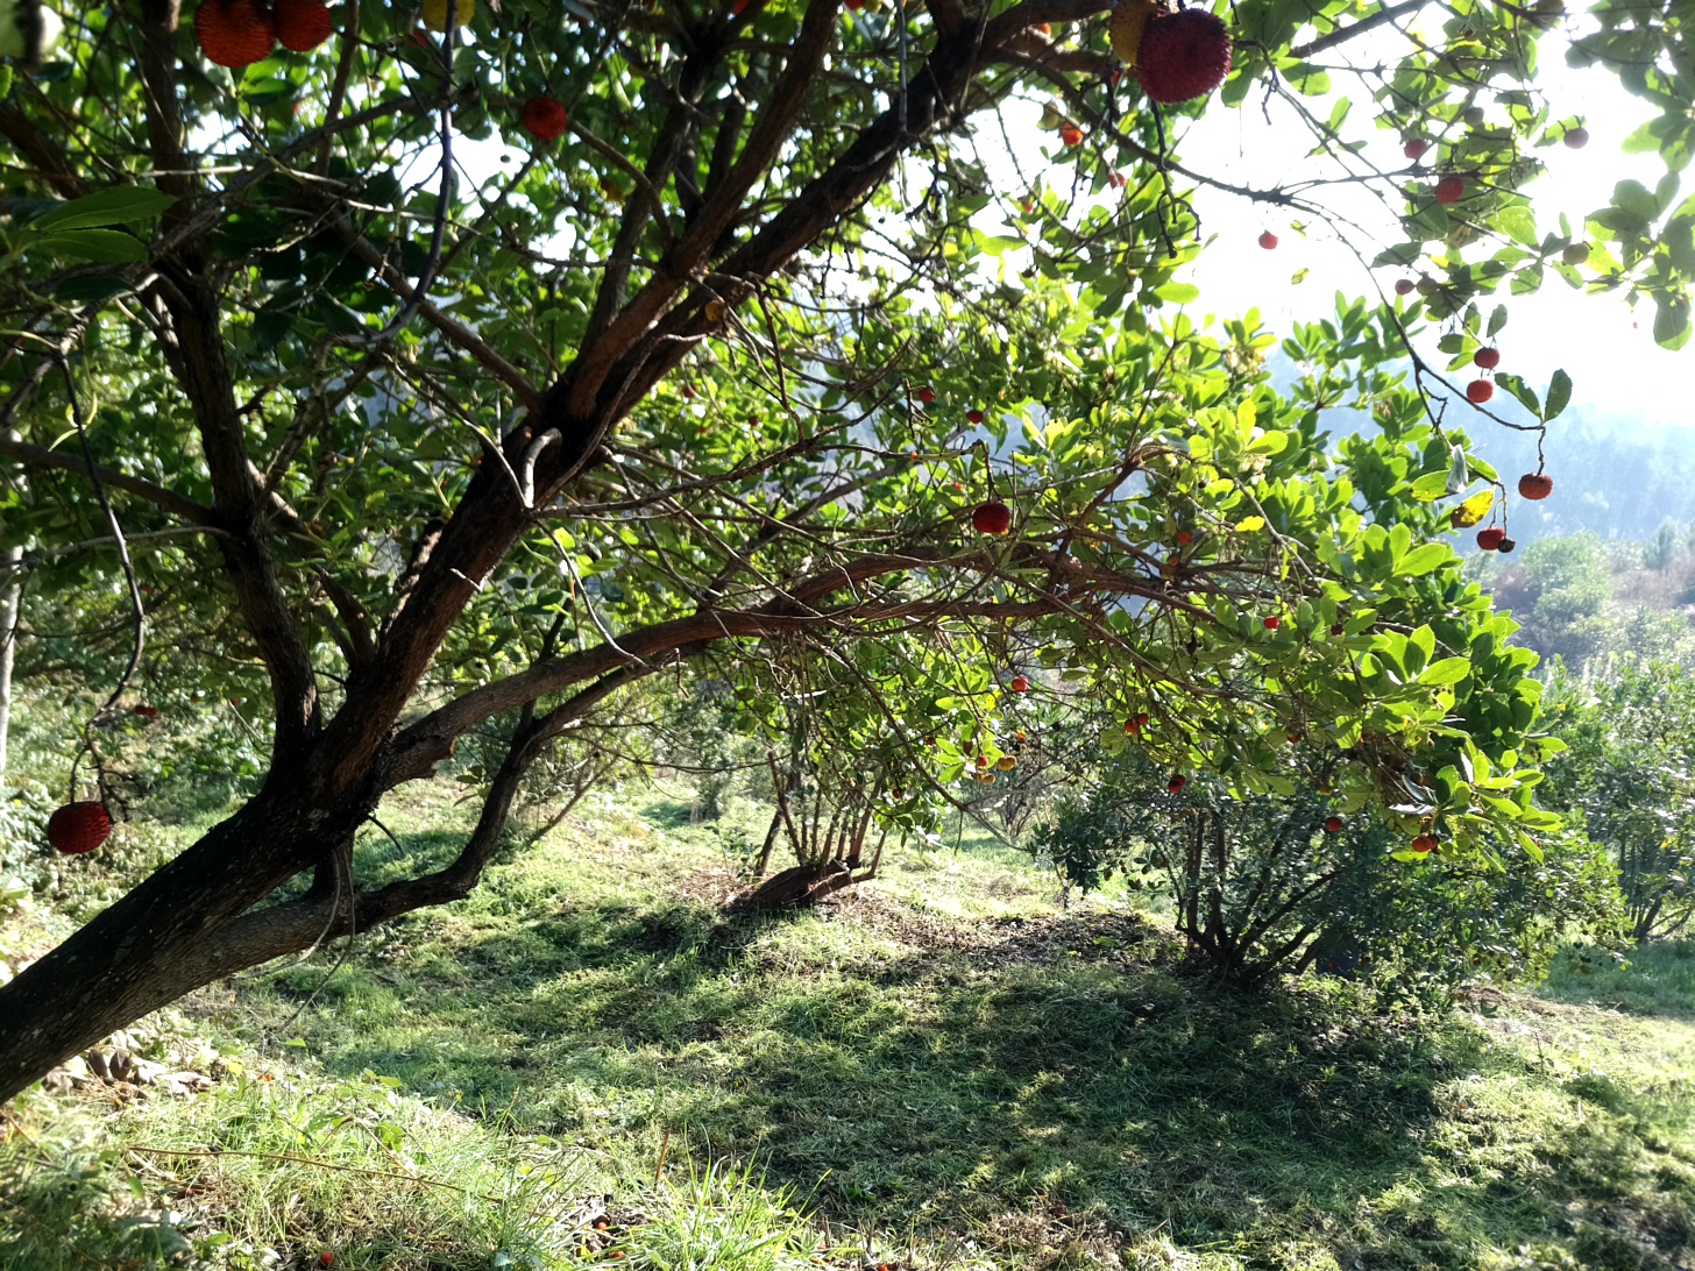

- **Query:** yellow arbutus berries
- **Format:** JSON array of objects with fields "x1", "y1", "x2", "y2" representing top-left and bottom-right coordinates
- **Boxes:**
[
  {"x1": 1016, "y1": 732, "x2": 1028, "y2": 743},
  {"x1": 998, "y1": 758, "x2": 1013, "y2": 771},
  {"x1": 1008, "y1": 756, "x2": 1017, "y2": 765},
  {"x1": 705, "y1": 300, "x2": 728, "y2": 321},
  {"x1": 1107, "y1": 1, "x2": 1160, "y2": 65},
  {"x1": 422, "y1": 0, "x2": 476, "y2": 32}
]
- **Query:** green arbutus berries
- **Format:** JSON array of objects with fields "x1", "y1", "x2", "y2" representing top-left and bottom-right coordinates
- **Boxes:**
[
  {"x1": 984, "y1": 774, "x2": 995, "y2": 784},
  {"x1": 973, "y1": 772, "x2": 983, "y2": 781},
  {"x1": 1463, "y1": 107, "x2": 1485, "y2": 127},
  {"x1": 1417, "y1": 278, "x2": 1437, "y2": 295}
]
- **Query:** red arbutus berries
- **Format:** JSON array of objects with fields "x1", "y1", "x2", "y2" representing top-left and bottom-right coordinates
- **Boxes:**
[
  {"x1": 1475, "y1": 348, "x2": 1499, "y2": 368},
  {"x1": 196, "y1": 0, "x2": 274, "y2": 68},
  {"x1": 1519, "y1": 473, "x2": 1553, "y2": 500},
  {"x1": 972, "y1": 499, "x2": 1011, "y2": 536},
  {"x1": 272, "y1": 0, "x2": 333, "y2": 52},
  {"x1": 682, "y1": 384, "x2": 698, "y2": 398},
  {"x1": 1326, "y1": 817, "x2": 1342, "y2": 833},
  {"x1": 966, "y1": 409, "x2": 984, "y2": 424},
  {"x1": 1171, "y1": 774, "x2": 1187, "y2": 786},
  {"x1": 893, "y1": 788, "x2": 904, "y2": 799},
  {"x1": 1169, "y1": 781, "x2": 1182, "y2": 793},
  {"x1": 1288, "y1": 731, "x2": 1301, "y2": 743},
  {"x1": 1109, "y1": 172, "x2": 1126, "y2": 188},
  {"x1": 926, "y1": 736, "x2": 935, "y2": 745},
  {"x1": 1177, "y1": 530, "x2": 1193, "y2": 545},
  {"x1": 148, "y1": 706, "x2": 158, "y2": 716},
  {"x1": 1124, "y1": 719, "x2": 1139, "y2": 735},
  {"x1": 748, "y1": 416, "x2": 759, "y2": 426},
  {"x1": 1018, "y1": 198, "x2": 1035, "y2": 211},
  {"x1": 525, "y1": 94, "x2": 568, "y2": 141},
  {"x1": 1063, "y1": 129, "x2": 1083, "y2": 145},
  {"x1": 135, "y1": 705, "x2": 148, "y2": 715},
  {"x1": 1137, "y1": 713, "x2": 1149, "y2": 724},
  {"x1": 1133, "y1": 7, "x2": 1233, "y2": 106},
  {"x1": 977, "y1": 755, "x2": 988, "y2": 766},
  {"x1": 1413, "y1": 836, "x2": 1431, "y2": 852},
  {"x1": 1259, "y1": 232, "x2": 1279, "y2": 250},
  {"x1": 1012, "y1": 676, "x2": 1028, "y2": 692},
  {"x1": 1395, "y1": 279, "x2": 1414, "y2": 295},
  {"x1": 1435, "y1": 178, "x2": 1464, "y2": 204},
  {"x1": 919, "y1": 388, "x2": 935, "y2": 402},
  {"x1": 1478, "y1": 526, "x2": 1504, "y2": 550},
  {"x1": 1467, "y1": 380, "x2": 1493, "y2": 402},
  {"x1": 49, "y1": 800, "x2": 110, "y2": 854},
  {"x1": 1404, "y1": 139, "x2": 1427, "y2": 158},
  {"x1": 1264, "y1": 615, "x2": 1279, "y2": 629}
]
